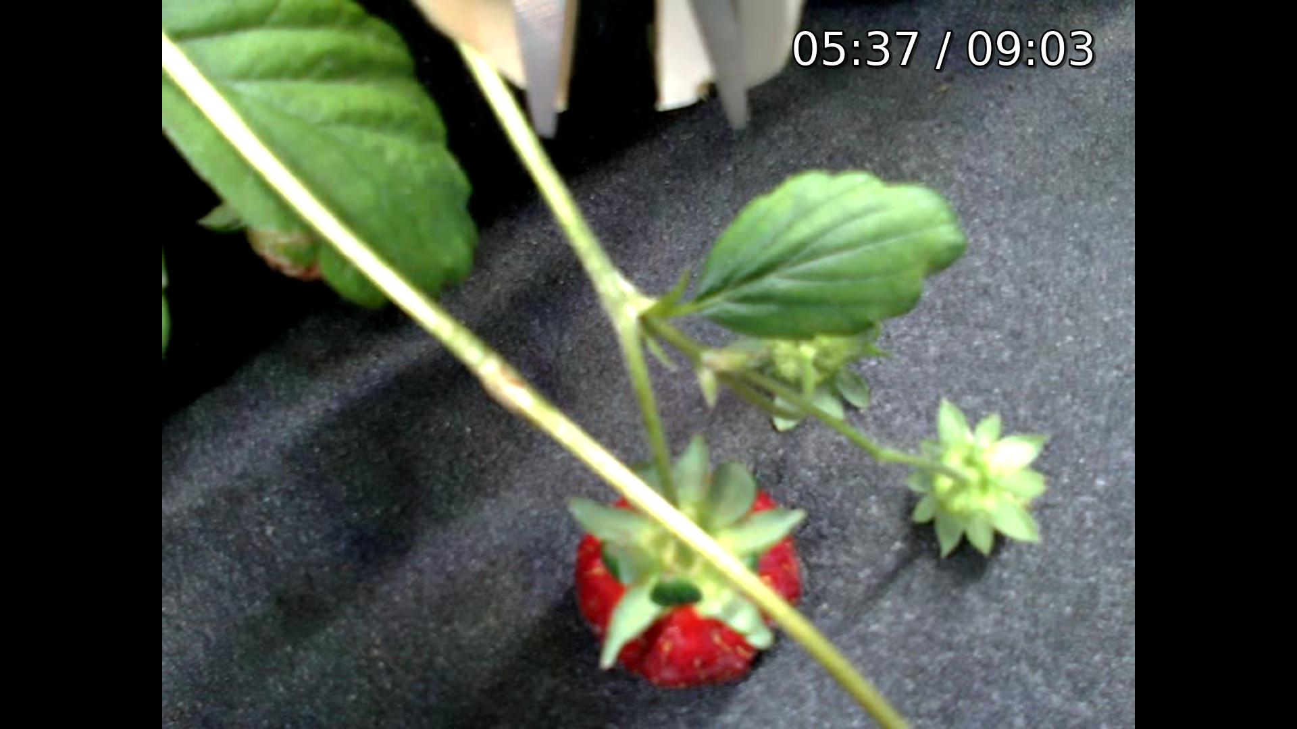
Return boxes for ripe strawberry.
[576,485,832,682]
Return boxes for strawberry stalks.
[894,435,989,499]
[621,381,689,591]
